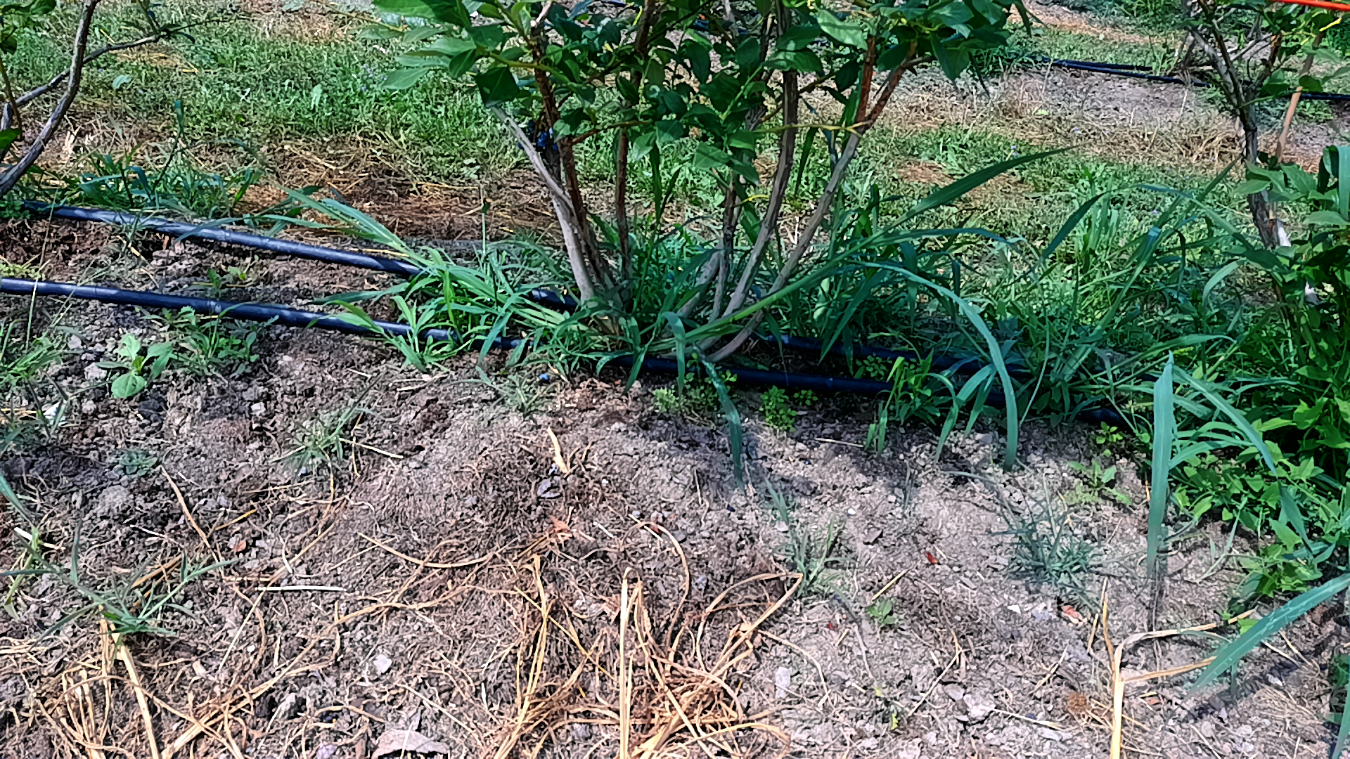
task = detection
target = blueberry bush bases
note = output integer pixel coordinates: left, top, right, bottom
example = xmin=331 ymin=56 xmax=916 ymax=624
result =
xmin=517 ymin=176 xmax=859 ymax=427
xmin=1142 ymin=35 xmax=1205 ymax=90
xmin=1209 ymin=146 xmax=1349 ymax=433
